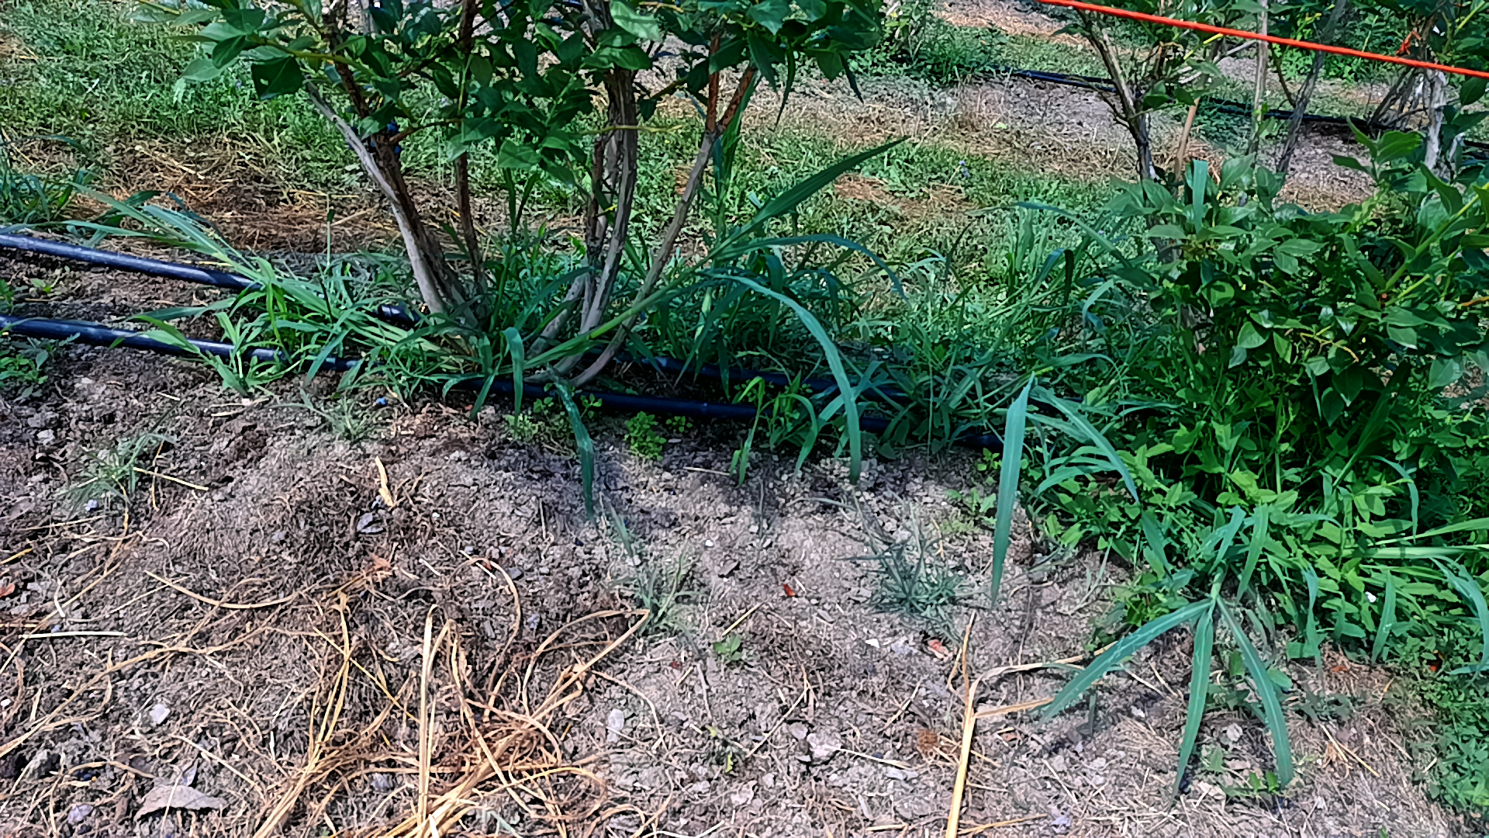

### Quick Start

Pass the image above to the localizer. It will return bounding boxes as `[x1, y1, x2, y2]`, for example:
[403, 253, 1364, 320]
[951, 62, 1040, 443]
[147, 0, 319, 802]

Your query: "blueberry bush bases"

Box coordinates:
[1103, 134, 1416, 548]
[351, 175, 732, 446]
